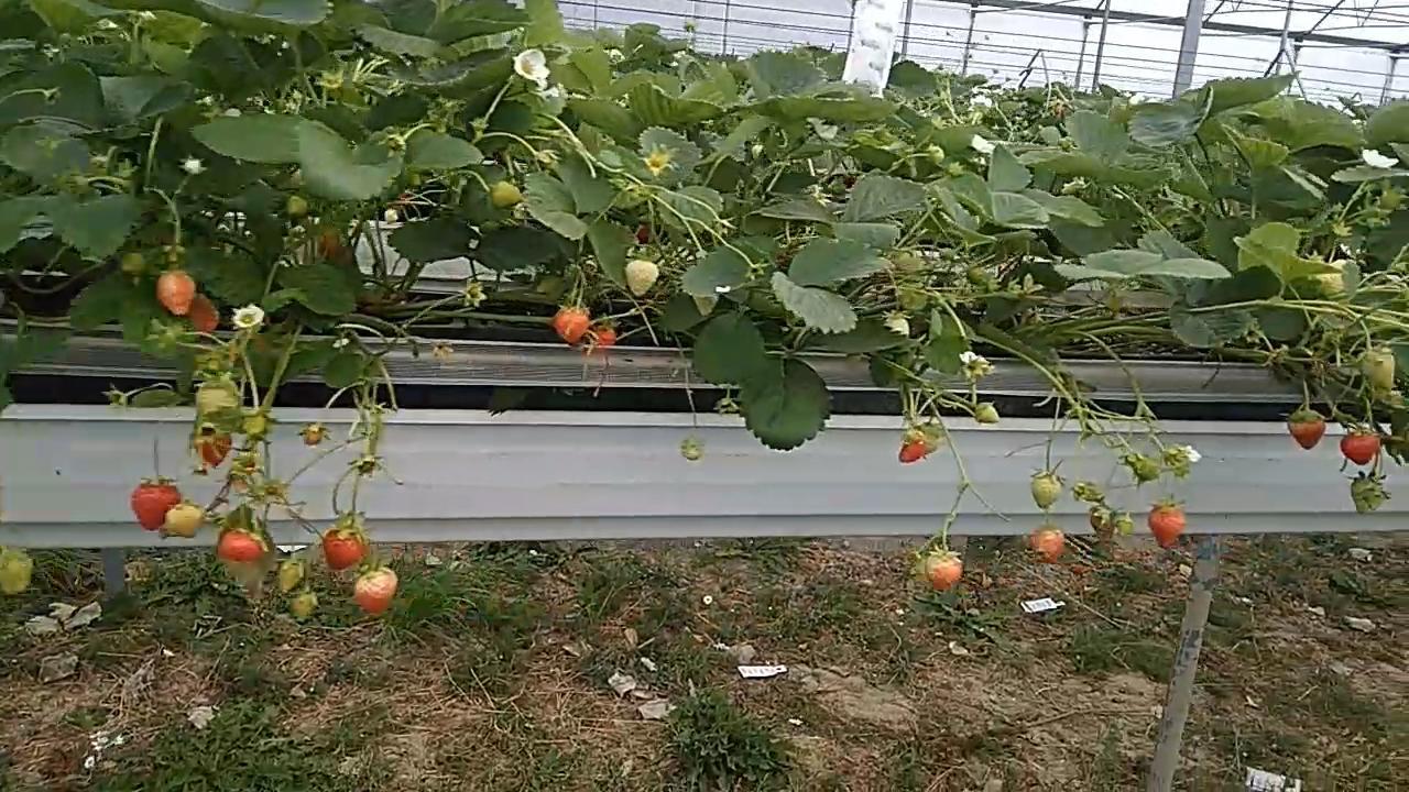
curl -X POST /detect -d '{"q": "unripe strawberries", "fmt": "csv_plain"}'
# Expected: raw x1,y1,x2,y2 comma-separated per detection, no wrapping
974,401,1006,424
352,569,399,614
488,180,527,208
930,145,945,163
286,195,308,218
625,259,660,296
1116,517,1135,537
1352,344,1404,401
923,549,968,593
680,436,707,463
164,503,204,535
1030,471,1069,509
0,545,40,598
1352,476,1395,517
292,589,318,621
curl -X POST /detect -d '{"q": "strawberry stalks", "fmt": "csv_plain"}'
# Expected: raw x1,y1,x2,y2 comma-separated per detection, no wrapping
343,473,359,544
936,498,960,560
1294,374,1315,421
559,280,589,313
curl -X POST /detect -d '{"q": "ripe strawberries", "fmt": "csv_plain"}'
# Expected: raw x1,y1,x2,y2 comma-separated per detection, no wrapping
1039,530,1071,560
318,531,365,570
595,329,622,344
551,311,589,342
160,274,204,318
193,430,232,467
129,483,177,532
1339,427,1381,464
1148,507,1192,547
897,440,926,463
217,528,264,561
1287,410,1329,450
